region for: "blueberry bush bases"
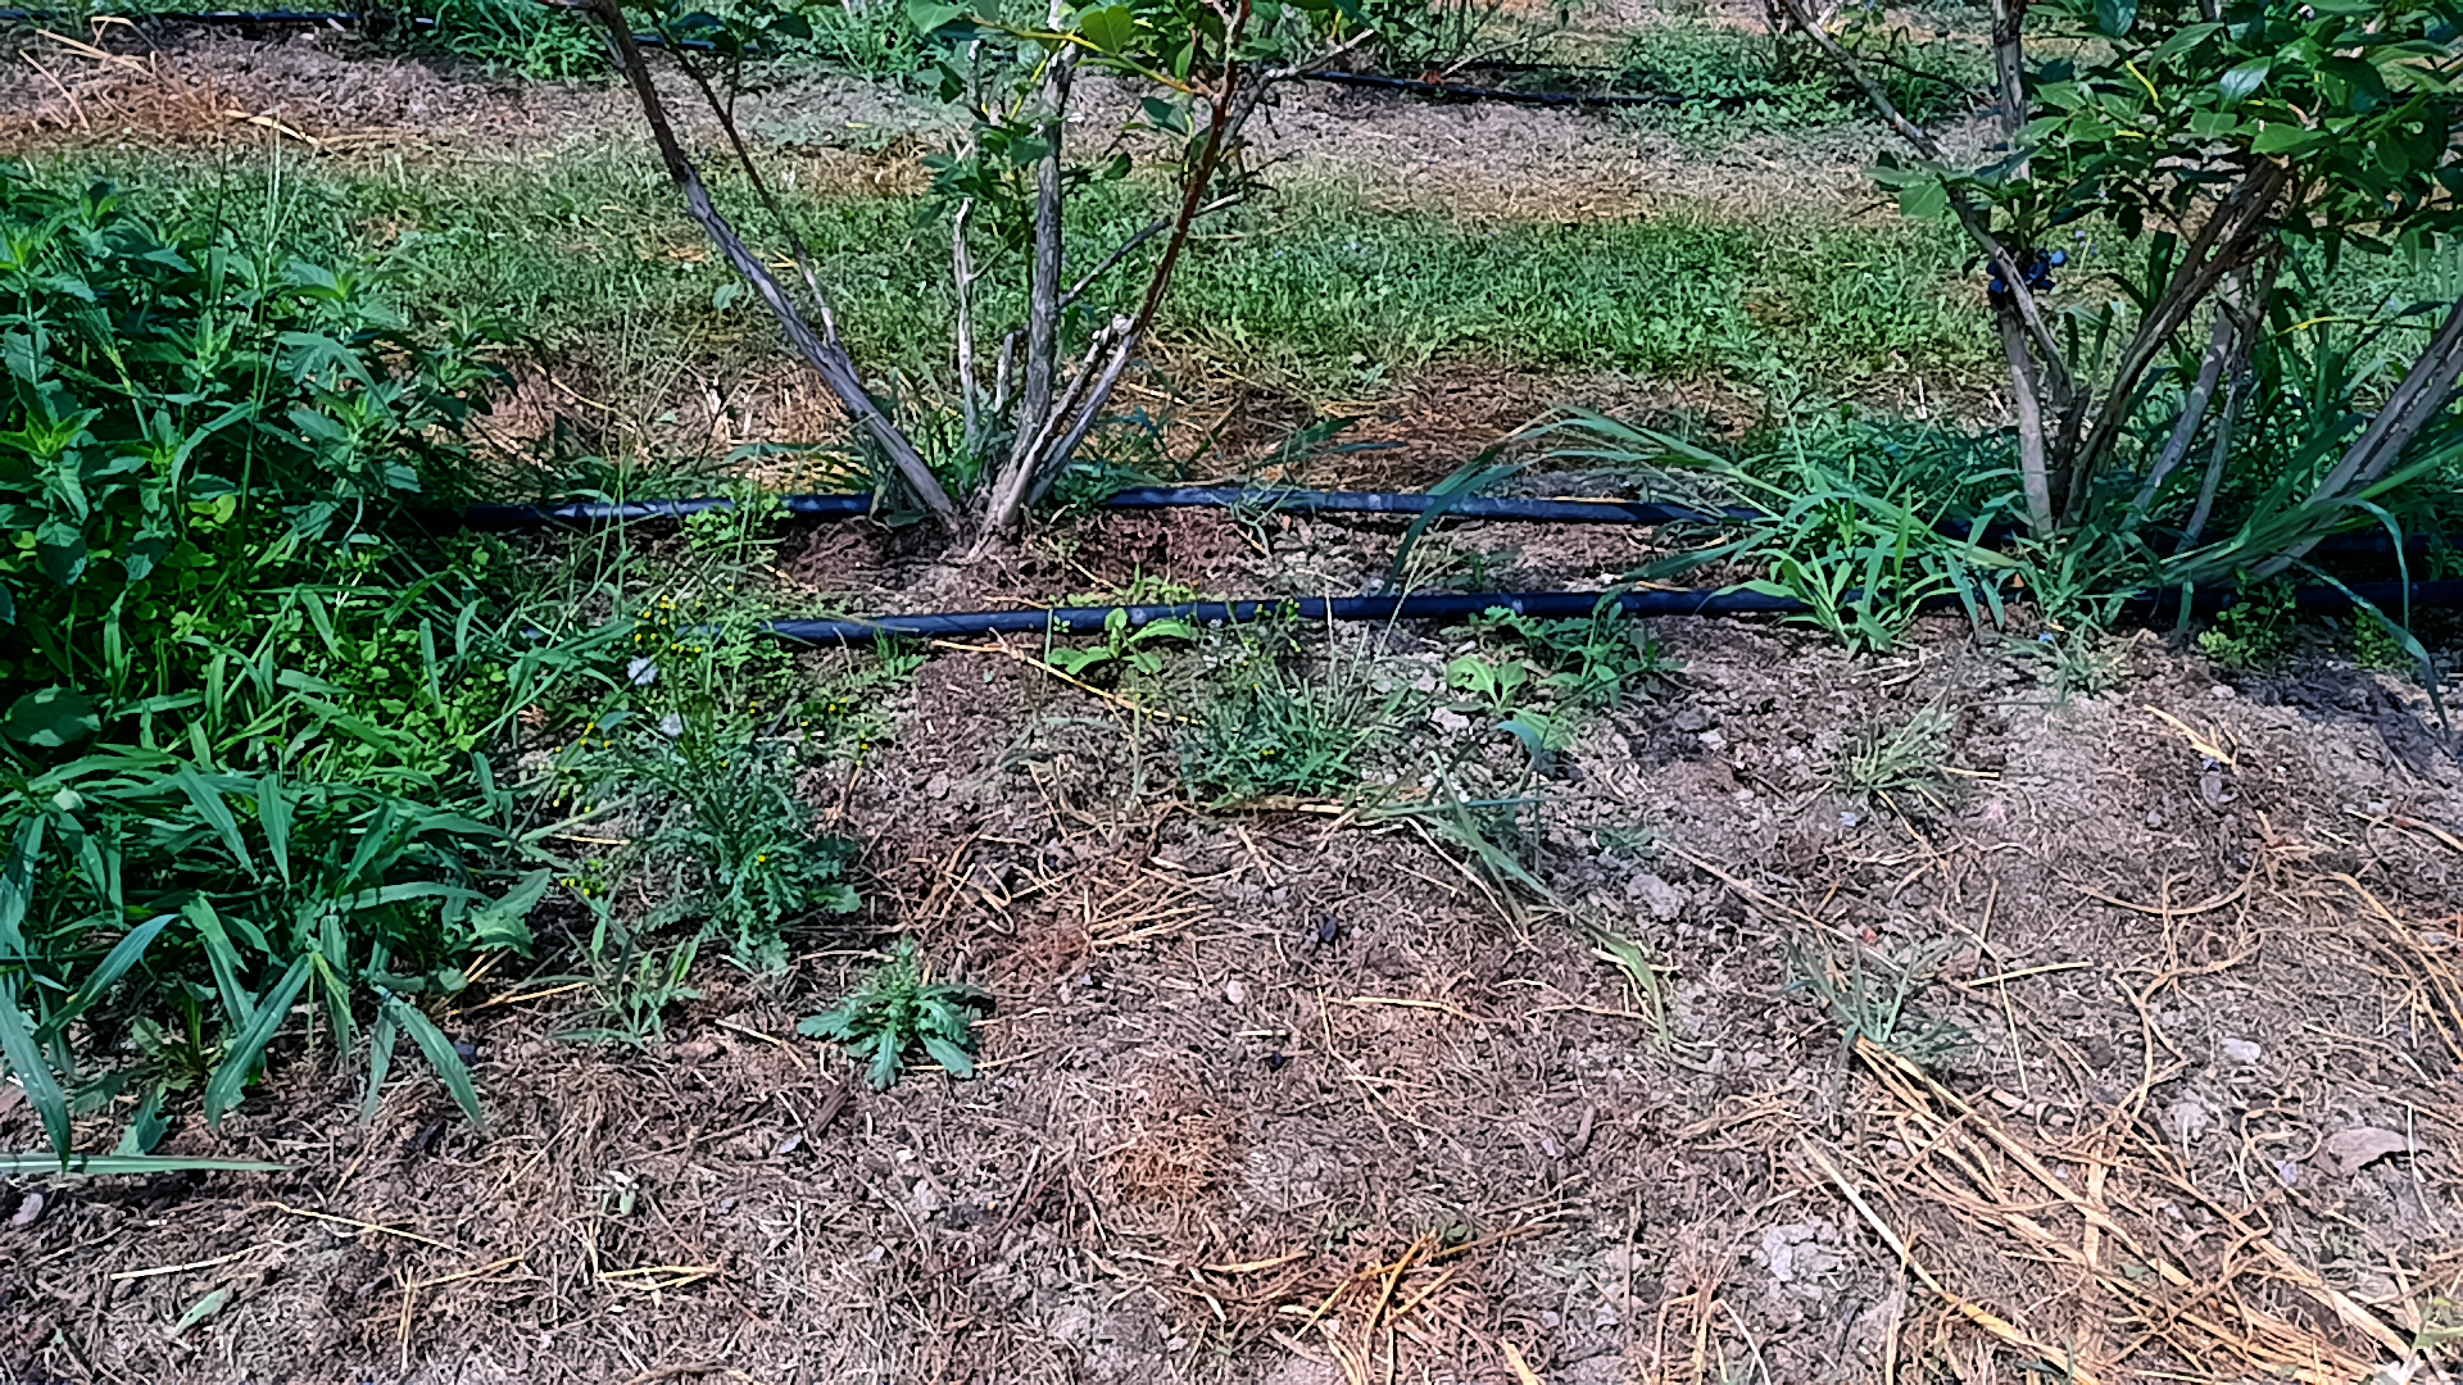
[1908,282,2451,696]
[693,237,1211,650]
[1724,0,1889,115]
